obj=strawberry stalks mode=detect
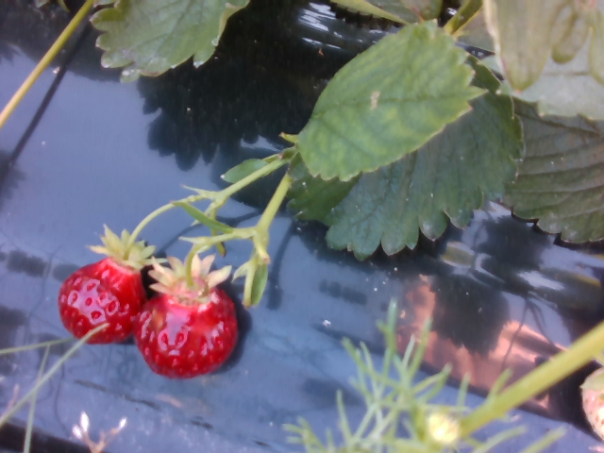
[108,202,176,282]
[176,234,219,325]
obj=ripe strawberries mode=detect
[148,285,242,372]
[56,261,139,347]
